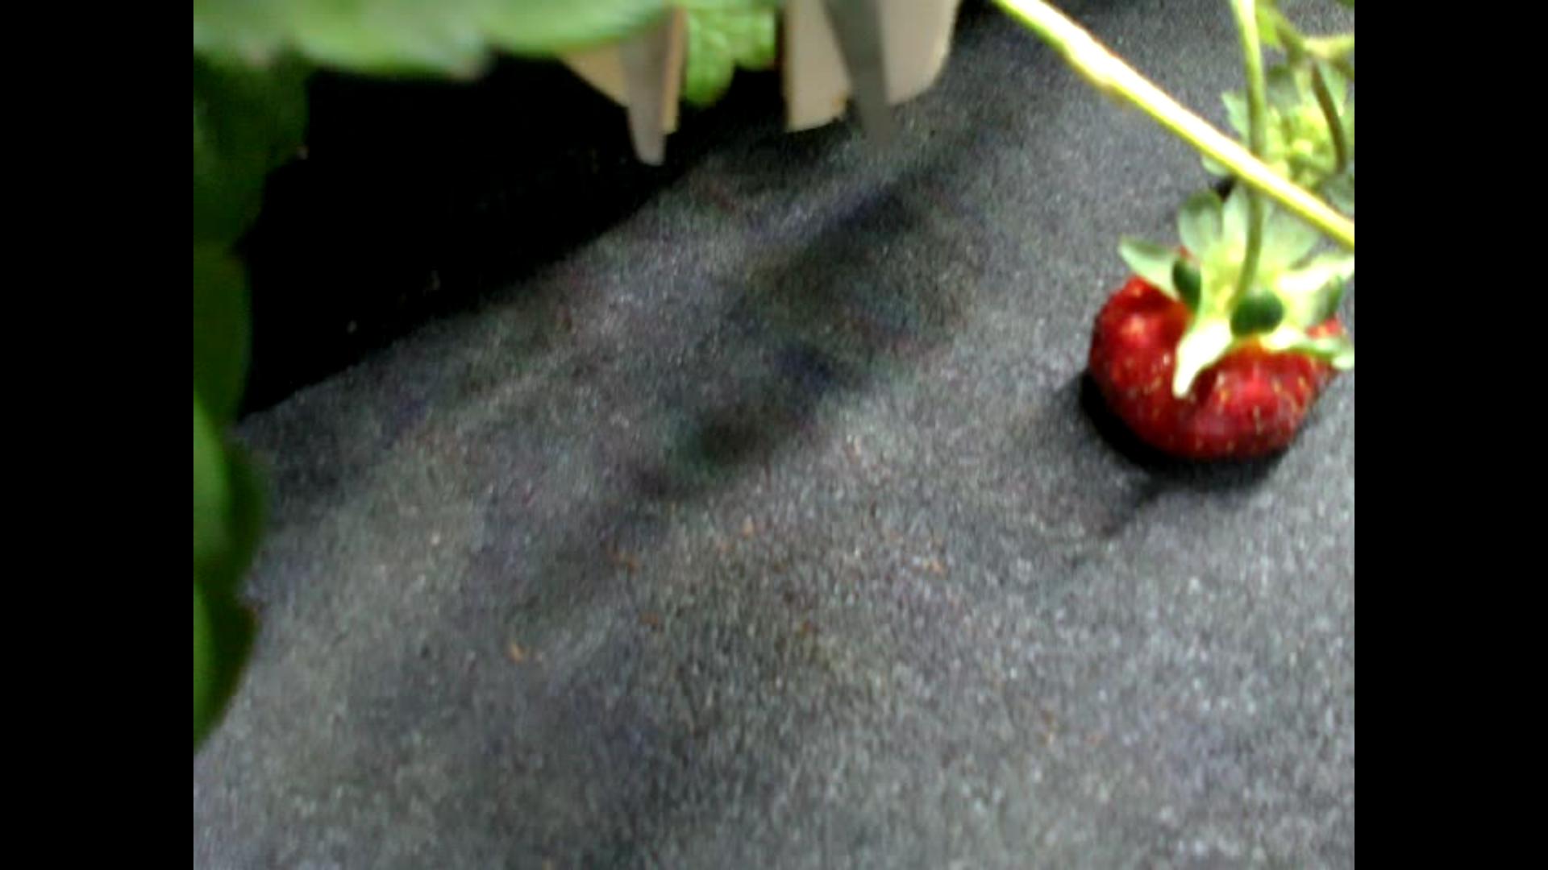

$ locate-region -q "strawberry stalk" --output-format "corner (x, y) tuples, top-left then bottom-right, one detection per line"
(1155, 0), (1315, 374)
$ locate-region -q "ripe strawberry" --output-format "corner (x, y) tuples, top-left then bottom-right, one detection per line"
(1053, 251), (1346, 464)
